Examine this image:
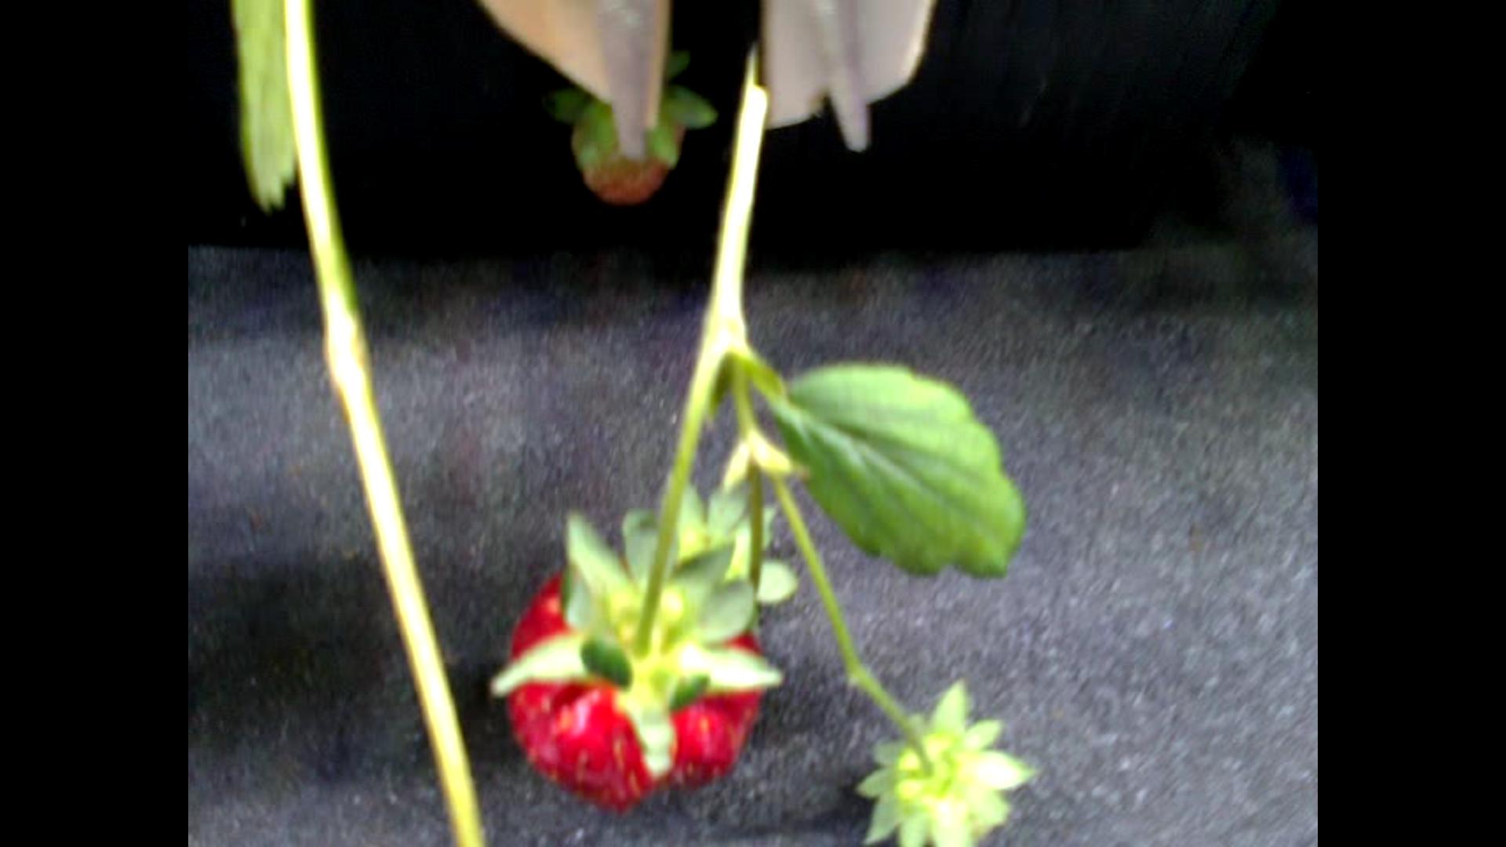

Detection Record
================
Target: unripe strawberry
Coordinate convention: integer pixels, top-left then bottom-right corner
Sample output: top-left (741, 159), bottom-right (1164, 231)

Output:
top-left (565, 70), bottom-right (685, 207)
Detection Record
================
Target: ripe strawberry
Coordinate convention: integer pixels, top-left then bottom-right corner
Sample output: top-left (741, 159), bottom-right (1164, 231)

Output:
top-left (433, 573), bottom-right (788, 847)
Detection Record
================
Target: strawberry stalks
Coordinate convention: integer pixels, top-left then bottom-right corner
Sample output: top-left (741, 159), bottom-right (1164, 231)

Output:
top-left (833, 602), bottom-right (925, 774)
top-left (606, 348), bottom-right (714, 703)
